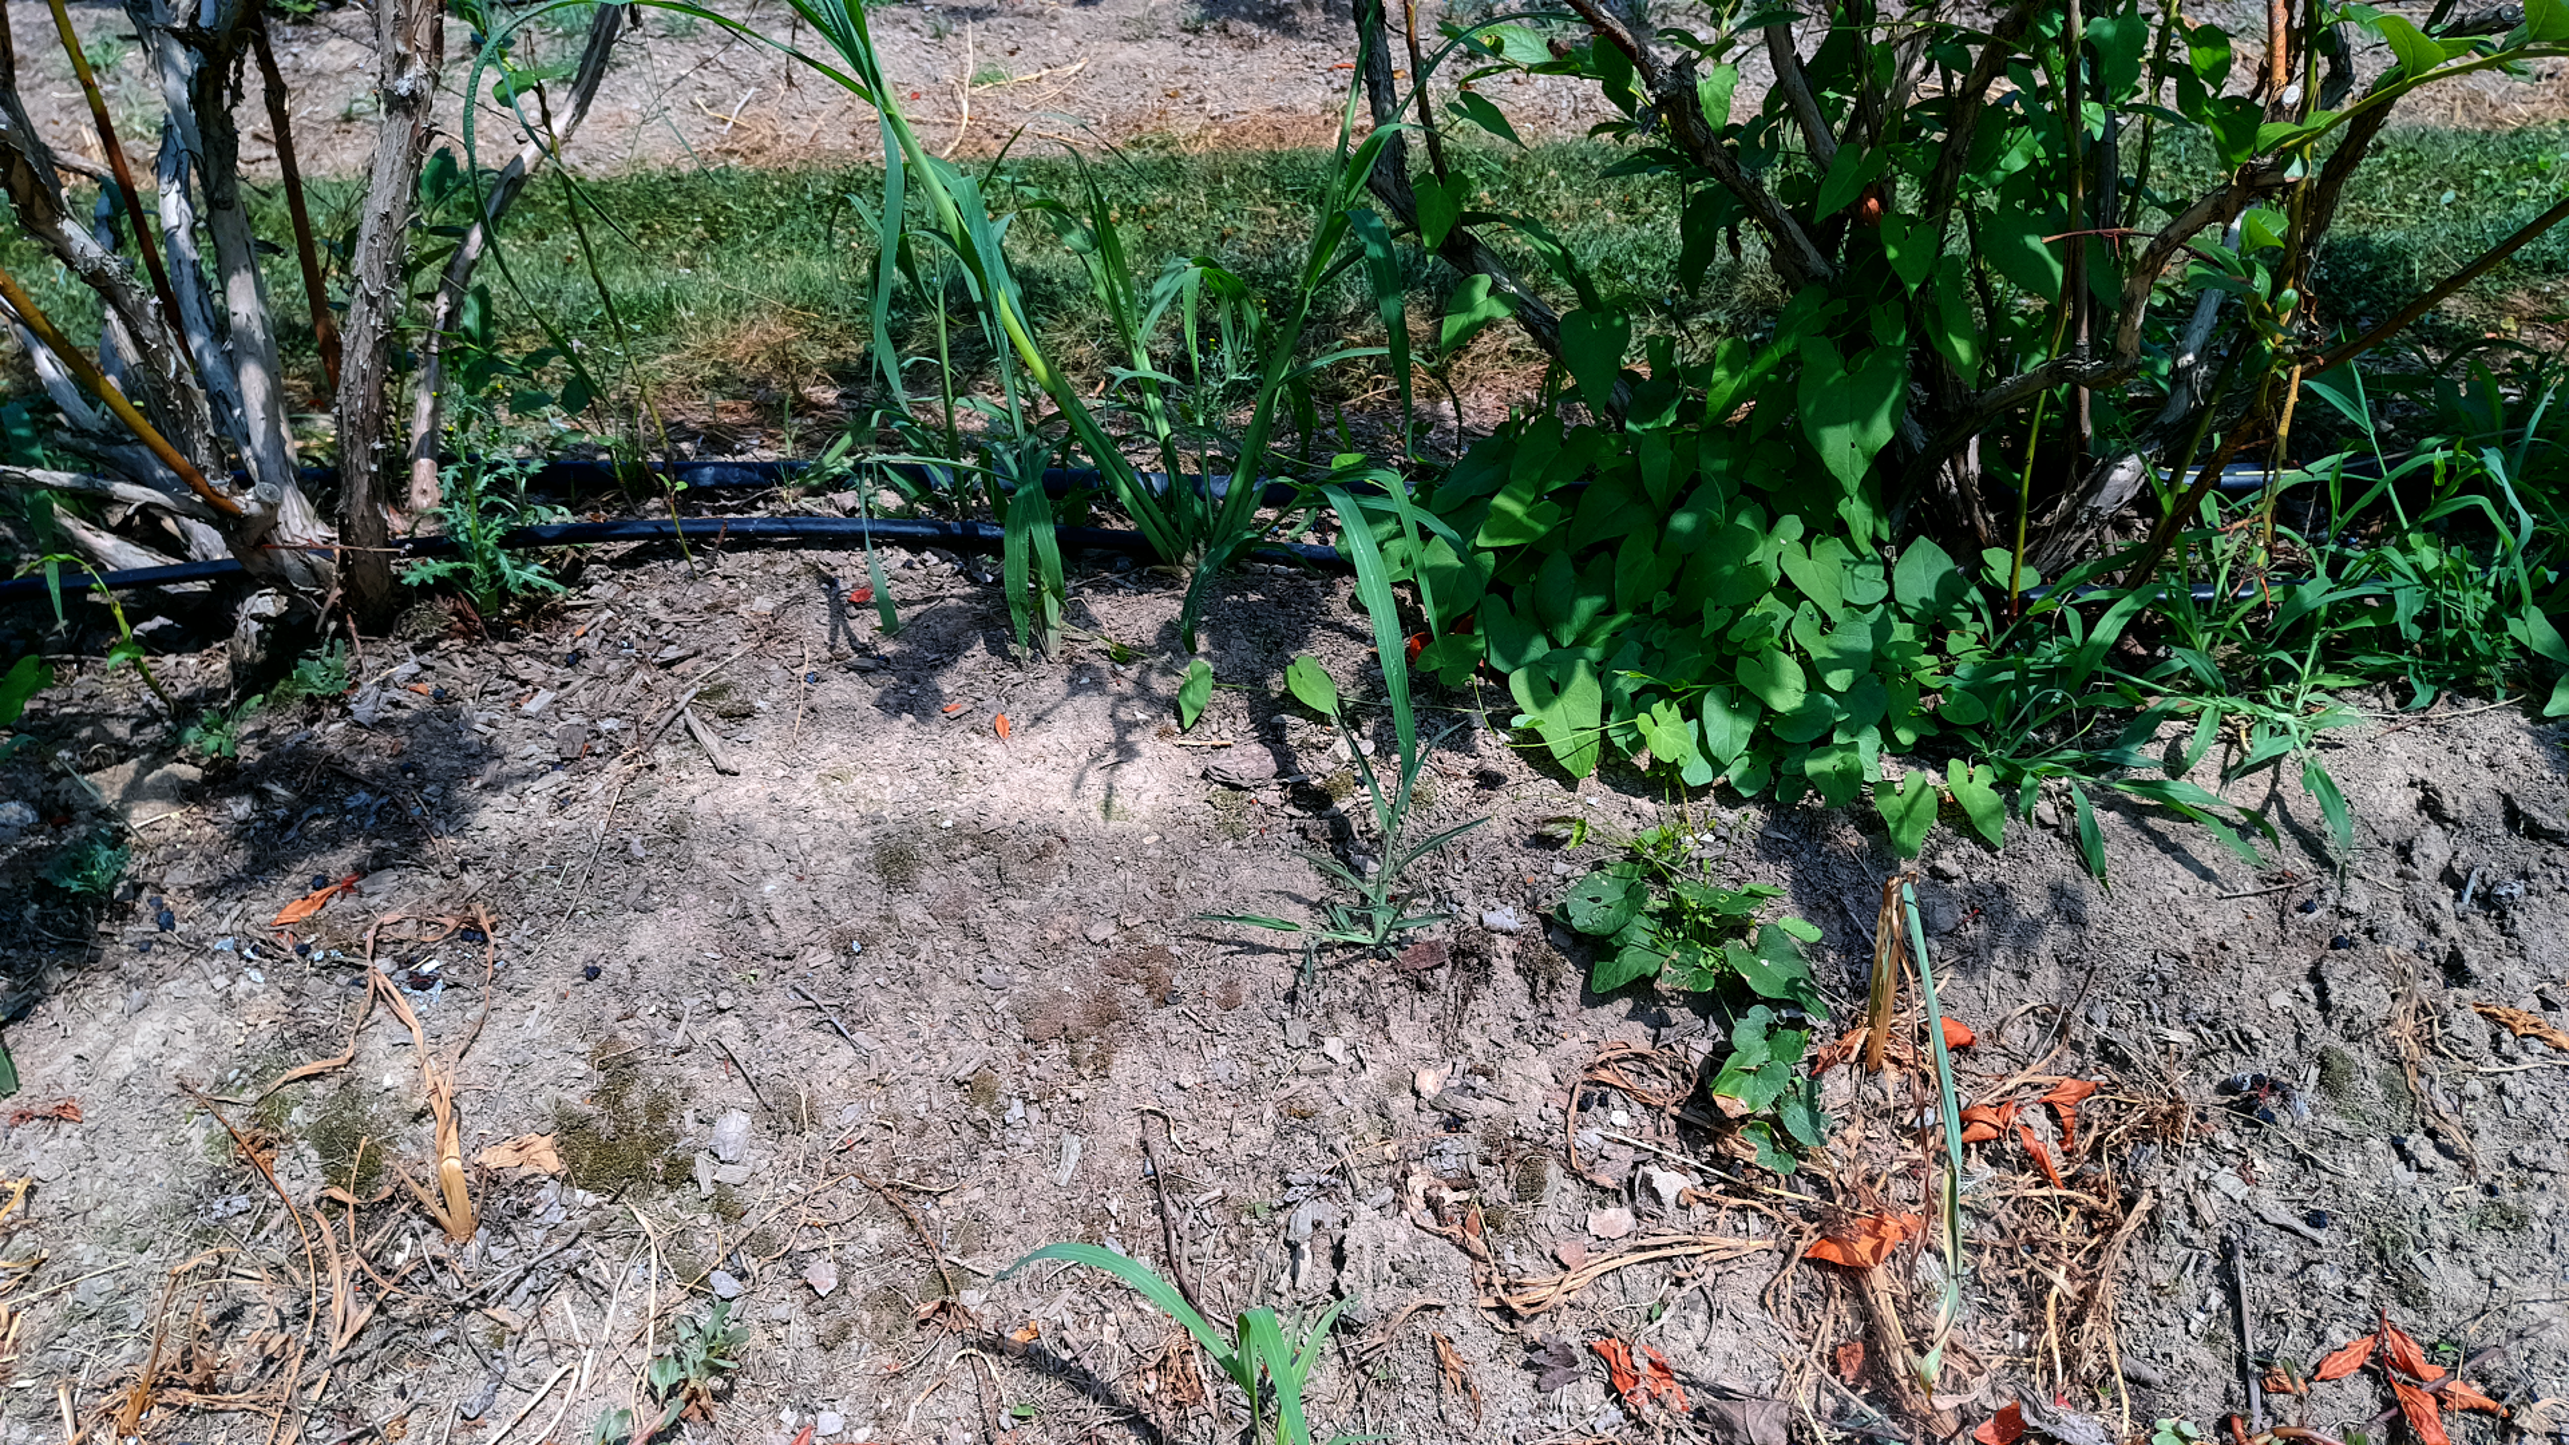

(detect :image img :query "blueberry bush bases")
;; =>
[1681,285,2319,776]
[13,237,545,751]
